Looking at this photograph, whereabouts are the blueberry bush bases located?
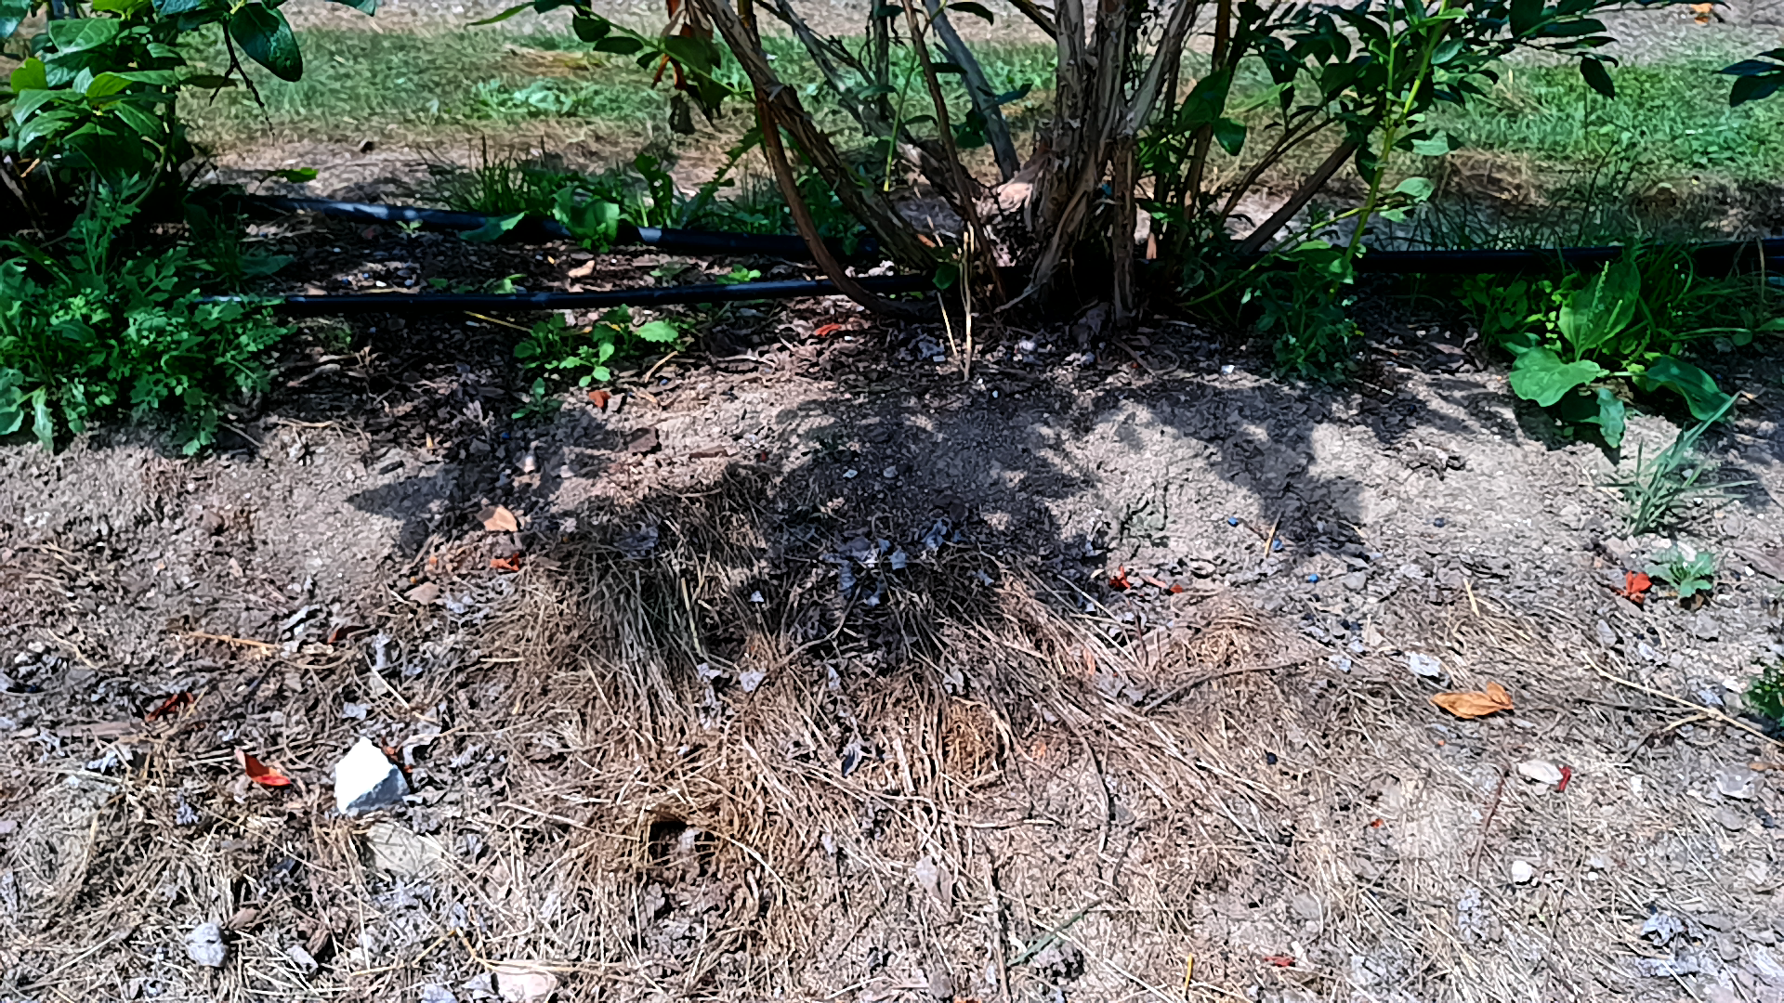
[5,59,220,364]
[778,48,1316,403]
